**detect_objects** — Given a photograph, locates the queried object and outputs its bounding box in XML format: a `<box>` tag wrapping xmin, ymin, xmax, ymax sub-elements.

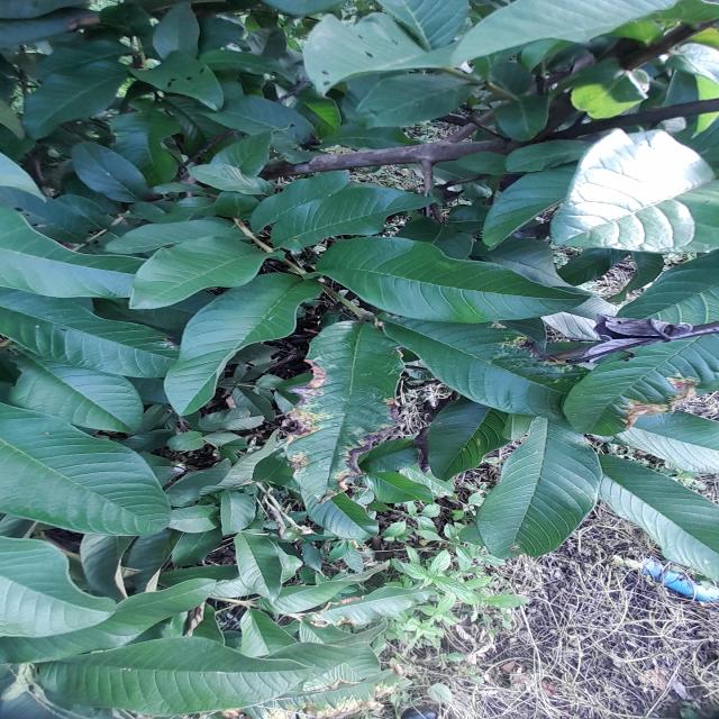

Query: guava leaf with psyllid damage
<box><xmin>281</xmin><ymin>317</ymin><xmax>413</xmax><ymax>517</ymax></box>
